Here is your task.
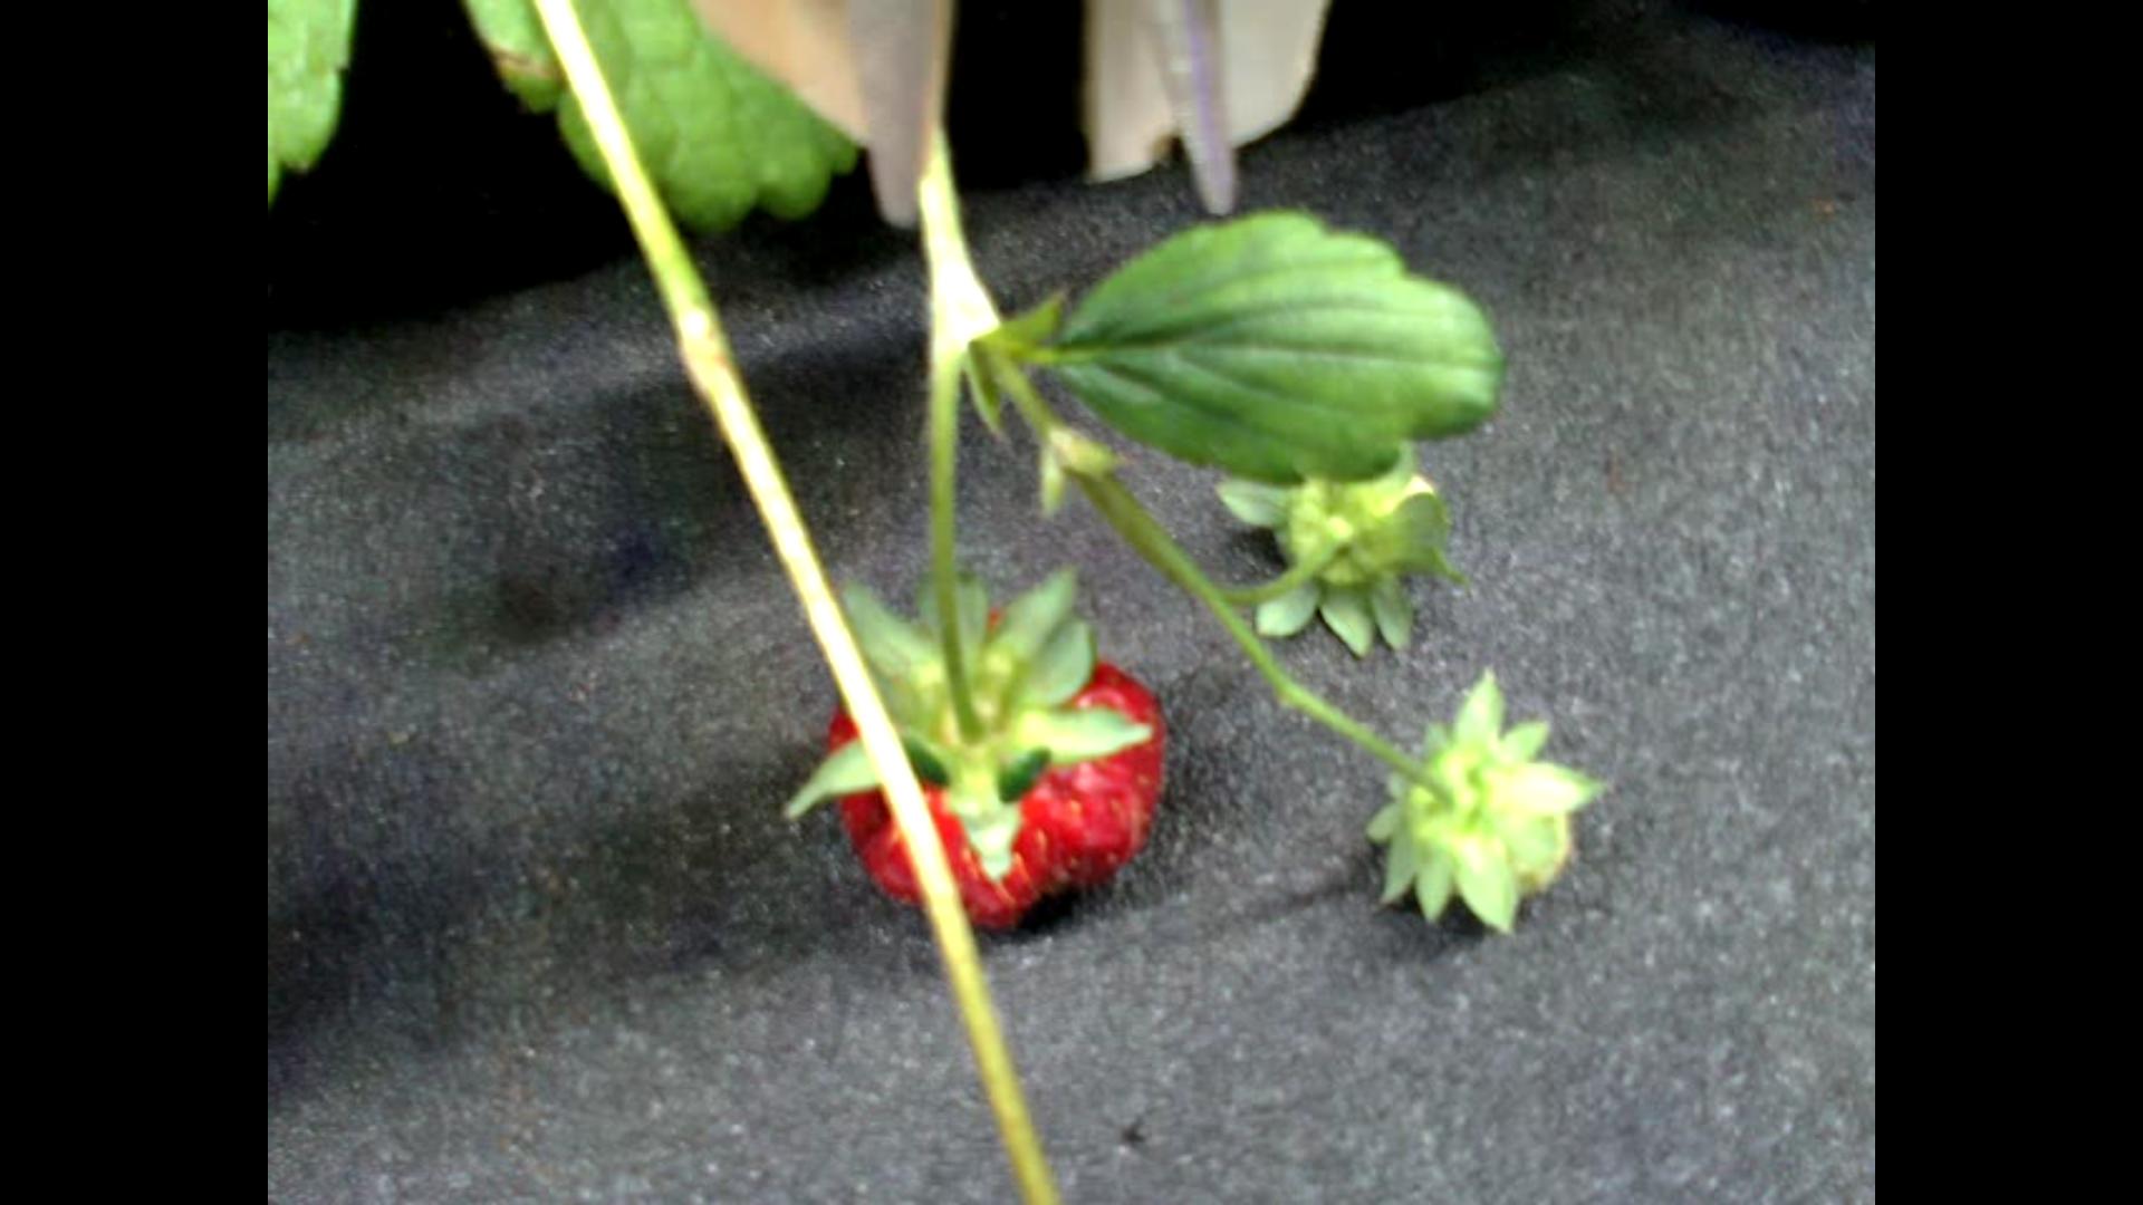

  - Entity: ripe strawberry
[808,599,1176,939]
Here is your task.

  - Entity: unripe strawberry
[1390,739,1591,916]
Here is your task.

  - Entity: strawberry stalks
[1227,516,1374,600]
[1313,682,1458,813]
[912,423,979,803]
